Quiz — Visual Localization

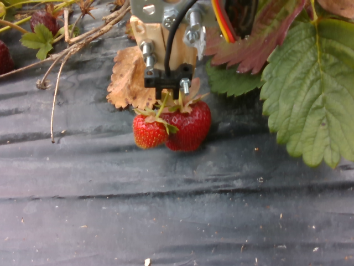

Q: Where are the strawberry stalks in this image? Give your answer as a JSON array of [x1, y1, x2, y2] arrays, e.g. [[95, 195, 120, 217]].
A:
[[180, 90, 191, 117], [149, 90, 170, 125]]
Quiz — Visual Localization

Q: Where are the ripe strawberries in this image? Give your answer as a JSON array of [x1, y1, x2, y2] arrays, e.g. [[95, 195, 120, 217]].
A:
[[163, 104, 211, 152], [135, 117, 165, 148]]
